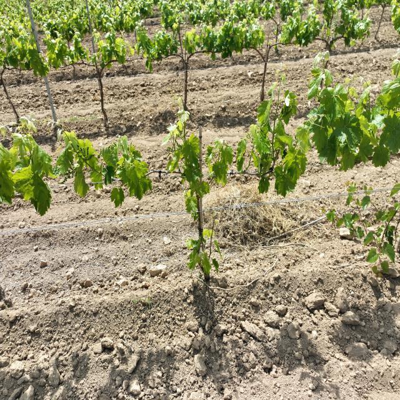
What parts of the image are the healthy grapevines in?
[305,62,400,284]
[53,104,312,290]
